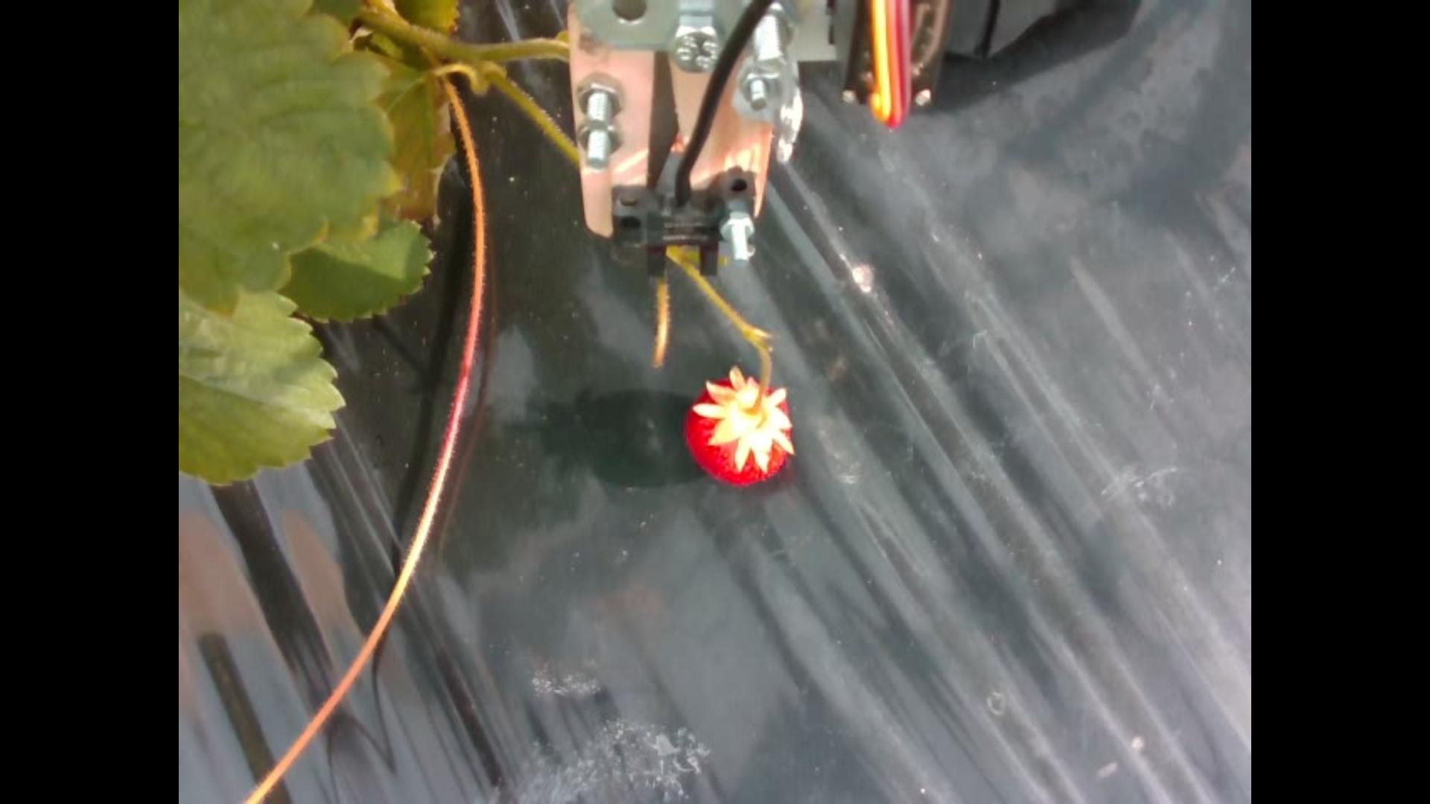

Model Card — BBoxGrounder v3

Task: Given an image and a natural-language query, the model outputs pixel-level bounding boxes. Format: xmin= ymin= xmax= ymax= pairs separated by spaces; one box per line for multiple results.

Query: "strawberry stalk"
xmin=707 ymin=310 xmax=785 ymax=424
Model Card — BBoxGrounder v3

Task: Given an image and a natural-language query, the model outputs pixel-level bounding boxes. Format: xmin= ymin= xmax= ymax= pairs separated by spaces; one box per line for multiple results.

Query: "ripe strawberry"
xmin=684 ymin=362 xmax=809 ymax=489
